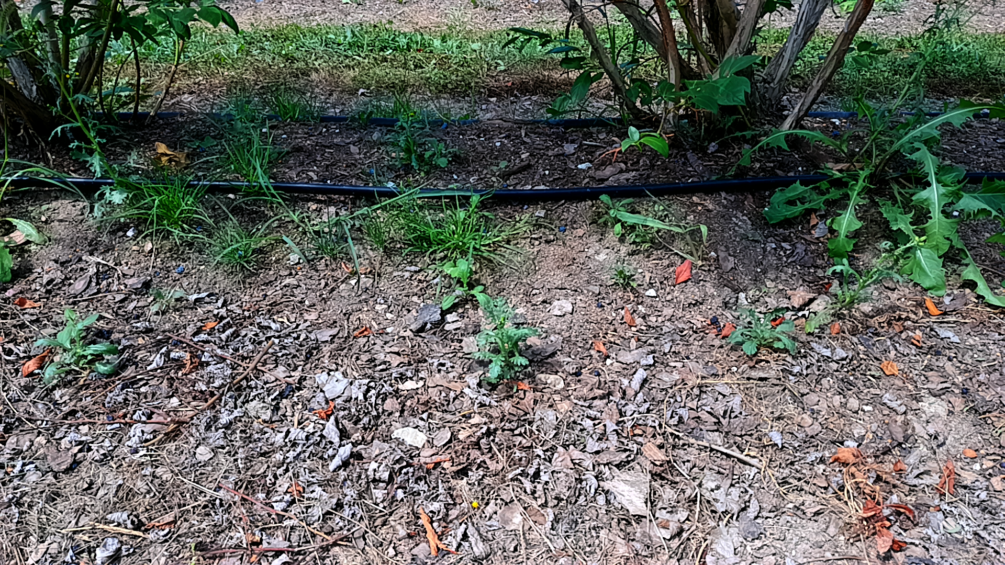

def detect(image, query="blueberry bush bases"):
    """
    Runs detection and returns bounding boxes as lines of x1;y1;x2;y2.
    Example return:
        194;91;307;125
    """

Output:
1;41;149;190
590;16;856;194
